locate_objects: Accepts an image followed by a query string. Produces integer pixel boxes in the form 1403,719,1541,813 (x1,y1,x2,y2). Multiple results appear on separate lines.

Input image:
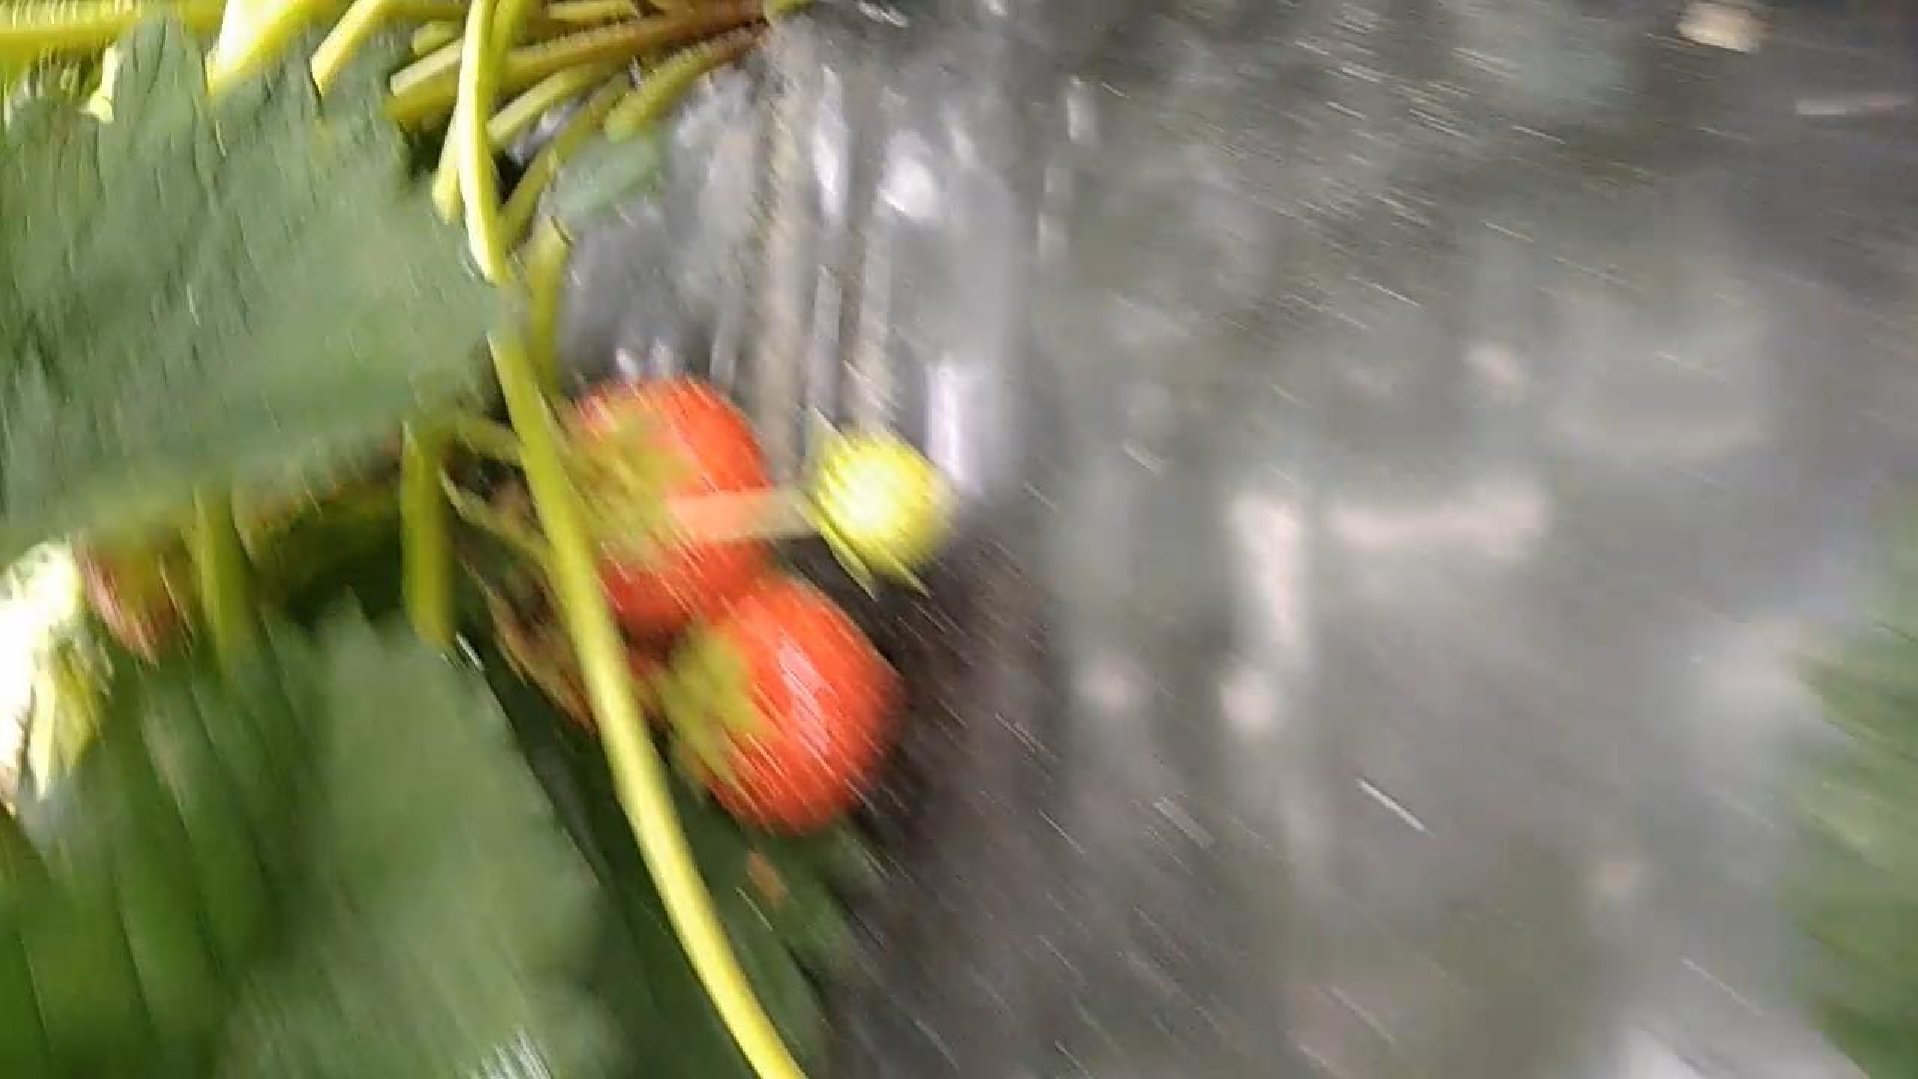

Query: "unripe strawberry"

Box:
800,414,978,588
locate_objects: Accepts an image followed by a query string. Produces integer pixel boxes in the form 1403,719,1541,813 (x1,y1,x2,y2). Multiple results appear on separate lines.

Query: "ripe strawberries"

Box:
545,395,771,629
672,576,901,834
